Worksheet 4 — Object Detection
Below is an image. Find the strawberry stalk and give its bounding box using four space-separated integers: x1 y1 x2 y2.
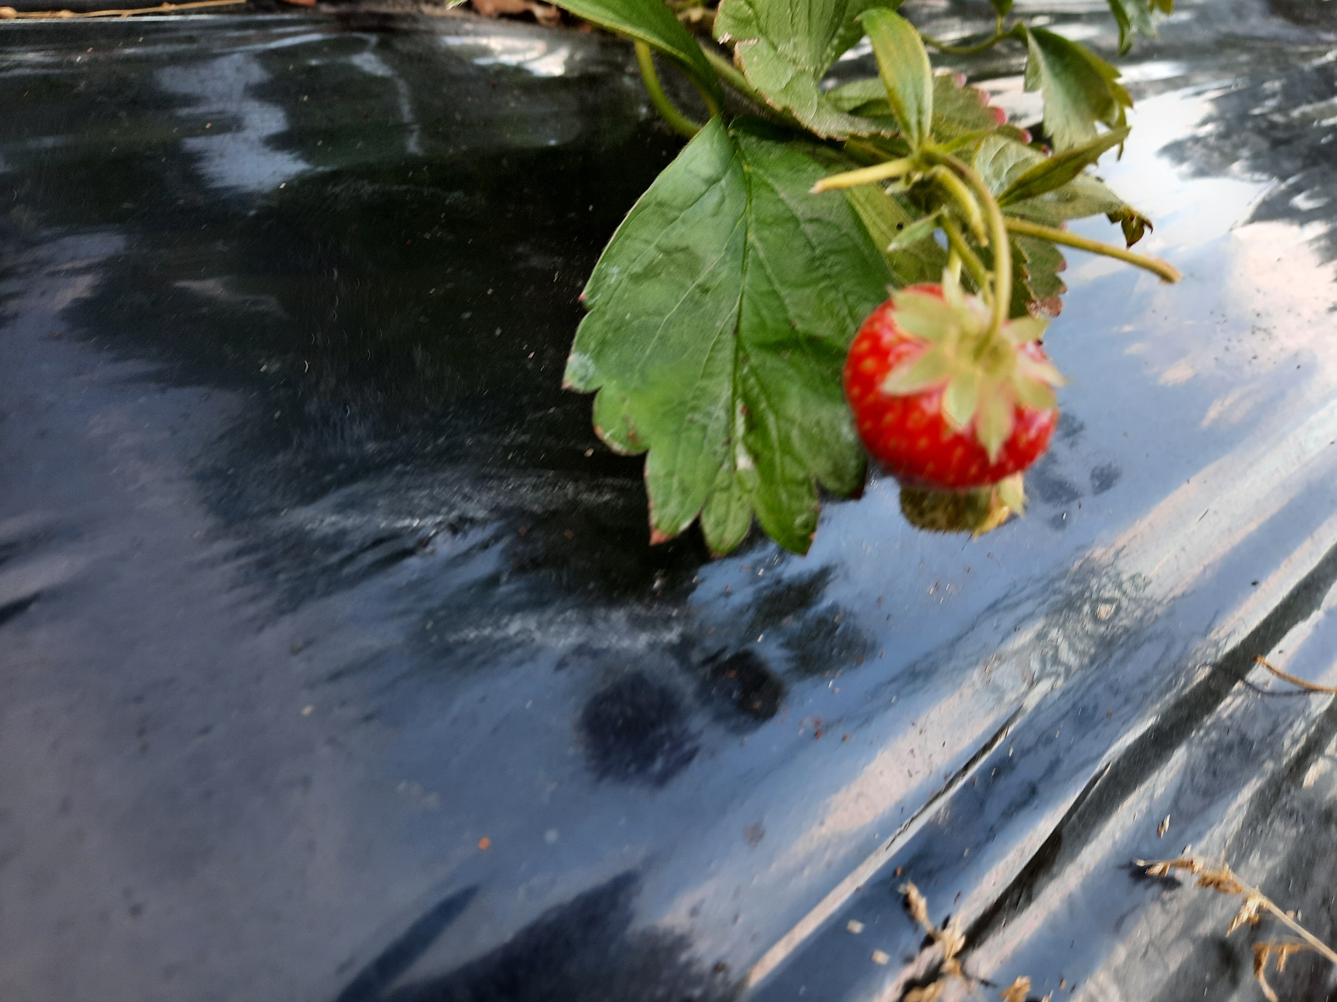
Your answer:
962 158 1012 400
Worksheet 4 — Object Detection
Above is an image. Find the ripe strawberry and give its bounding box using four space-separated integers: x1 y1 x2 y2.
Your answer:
861 305 1059 490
